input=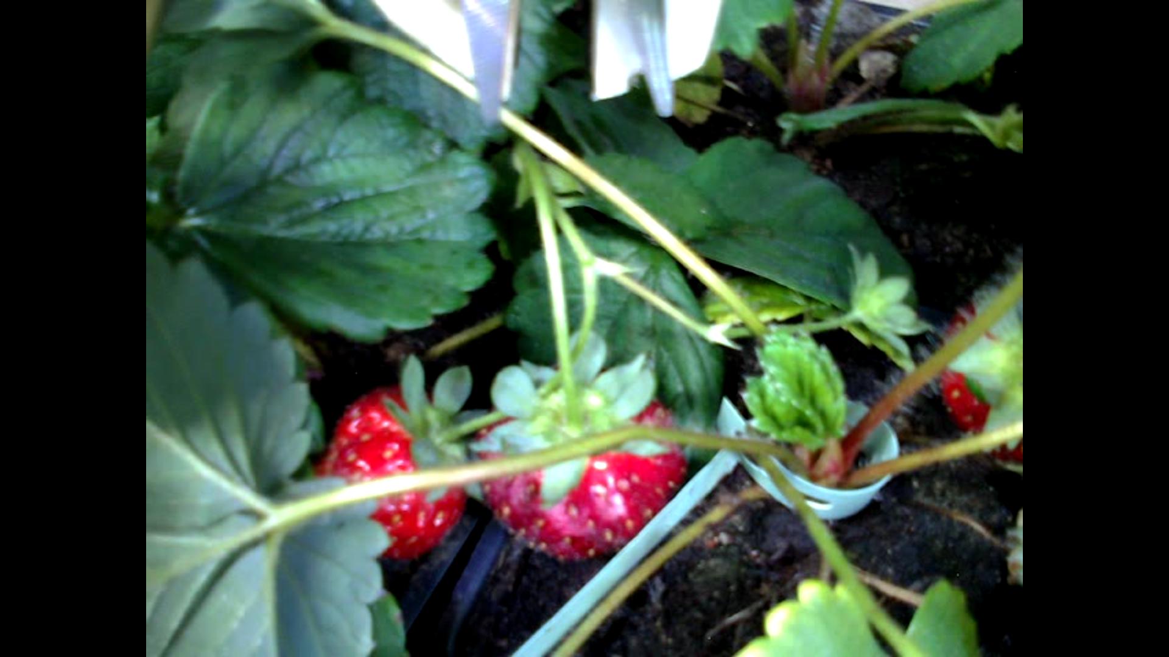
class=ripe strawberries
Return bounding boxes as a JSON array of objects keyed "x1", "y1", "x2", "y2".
[
  {"x1": 931, "y1": 288, "x2": 1024, "y2": 469},
  {"x1": 243, "y1": 342, "x2": 469, "y2": 567},
  {"x1": 477, "y1": 354, "x2": 678, "y2": 563}
]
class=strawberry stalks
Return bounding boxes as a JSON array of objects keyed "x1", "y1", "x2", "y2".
[
  {"x1": 530, "y1": 204, "x2": 589, "y2": 447},
  {"x1": 417, "y1": 357, "x2": 564, "y2": 472}
]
